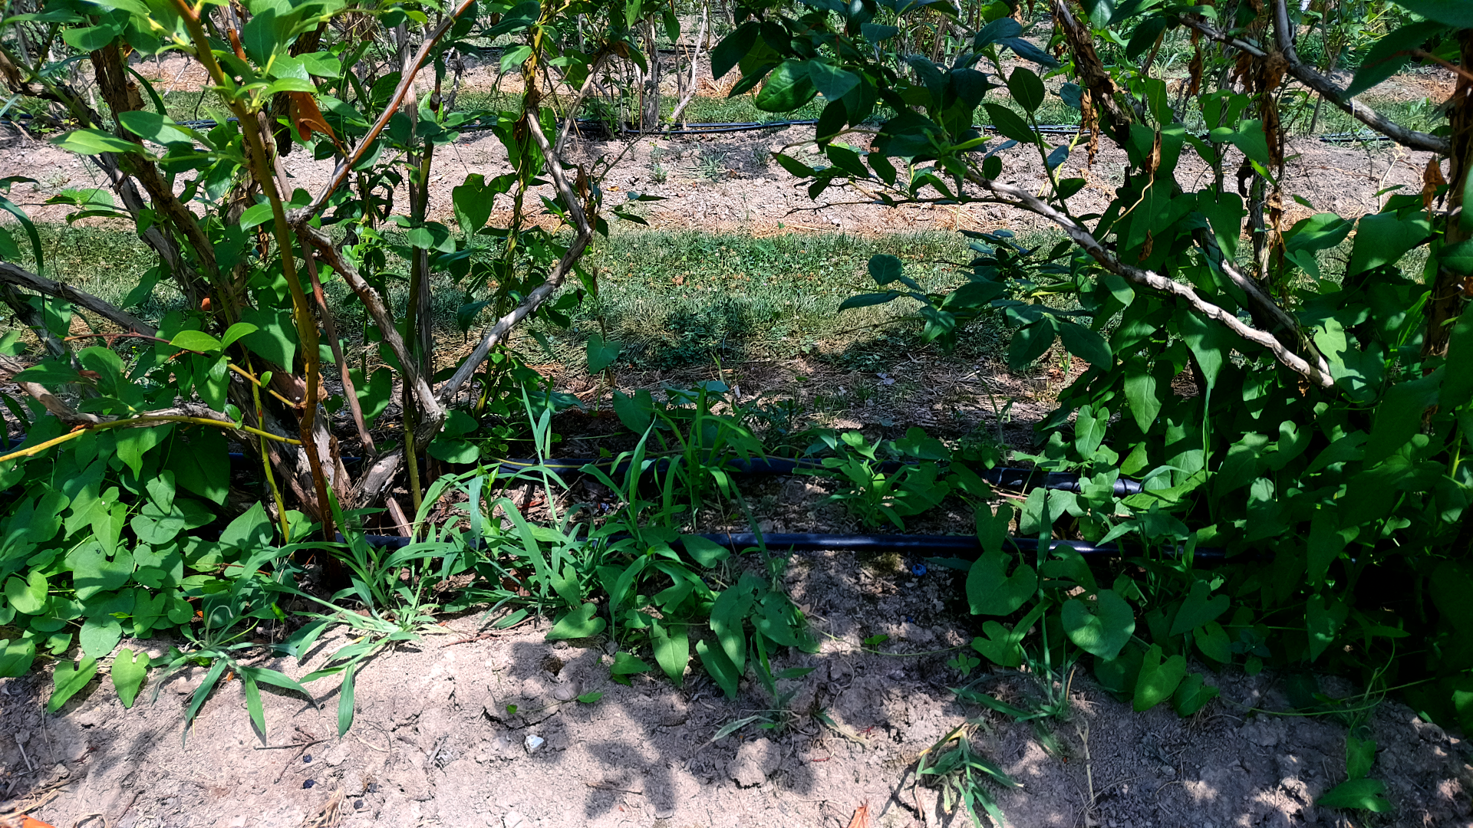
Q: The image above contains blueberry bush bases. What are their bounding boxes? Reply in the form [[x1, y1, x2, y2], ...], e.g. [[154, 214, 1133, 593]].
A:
[[1076, 233, 1473, 704], [70, 281, 573, 670], [562, 88, 697, 146]]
